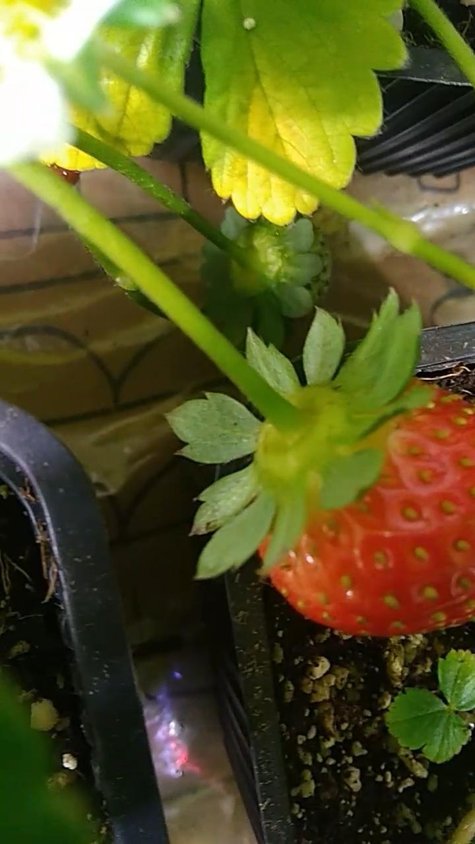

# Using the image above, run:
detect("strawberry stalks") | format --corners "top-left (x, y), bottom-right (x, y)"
top-left (121, 269), bottom-right (311, 468)
top-left (165, 218), bottom-right (276, 278)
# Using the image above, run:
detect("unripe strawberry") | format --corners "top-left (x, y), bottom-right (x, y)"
top-left (217, 207), bottom-right (331, 313)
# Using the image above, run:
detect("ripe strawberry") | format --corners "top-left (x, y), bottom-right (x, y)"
top-left (259, 368), bottom-right (475, 645)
